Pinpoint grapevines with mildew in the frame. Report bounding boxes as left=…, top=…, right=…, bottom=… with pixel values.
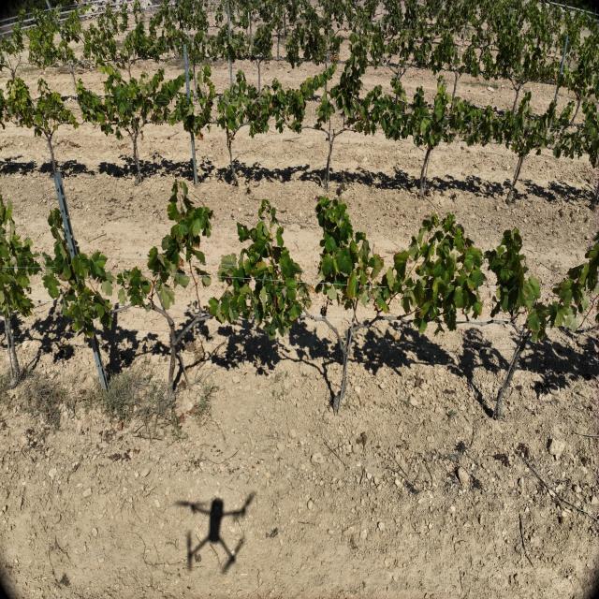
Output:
left=0, top=183, right=42, bottom=402
left=228, top=189, right=489, bottom=425
left=481, top=223, right=599, bottom=430
left=41, top=173, right=266, bottom=421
